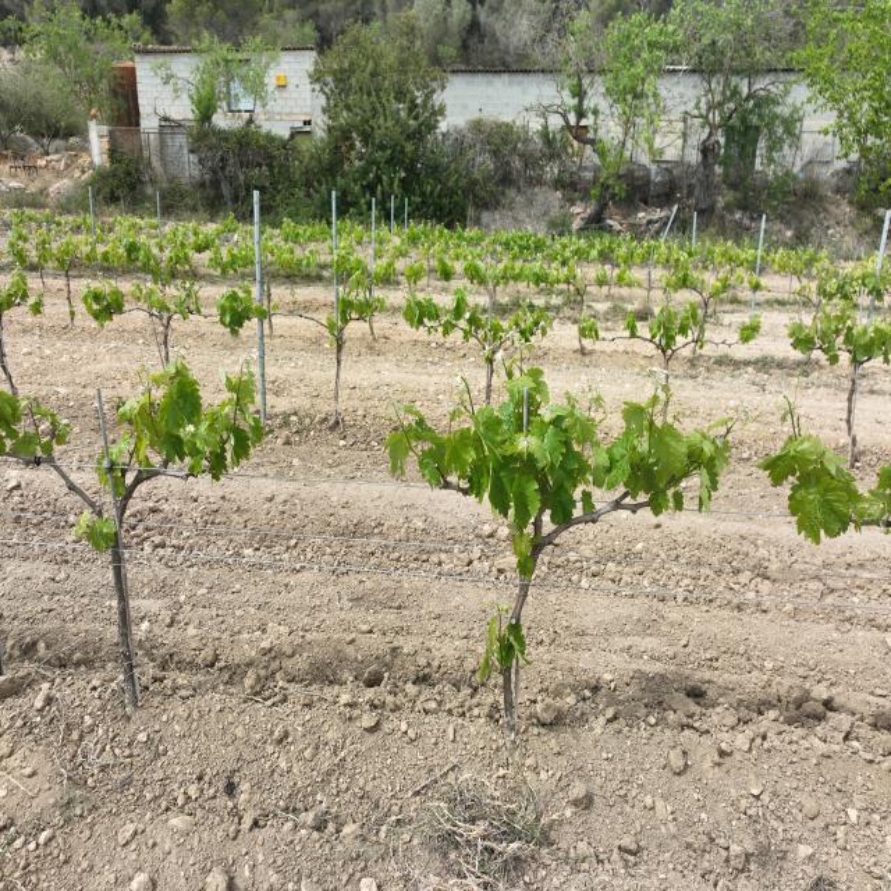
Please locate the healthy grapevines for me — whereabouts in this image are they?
[370,386,741,744]
[0,351,278,727]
